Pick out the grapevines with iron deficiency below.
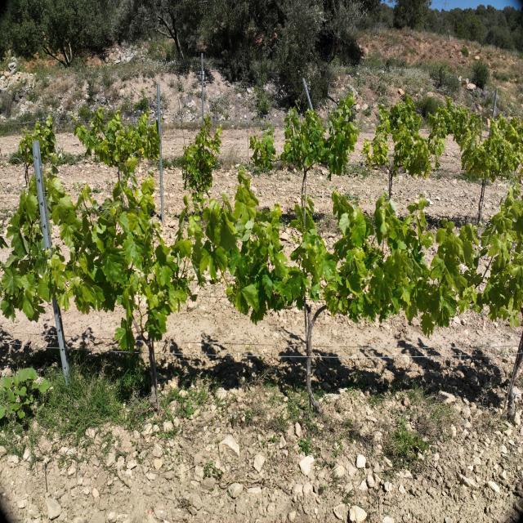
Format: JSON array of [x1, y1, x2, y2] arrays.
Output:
[[0, 169, 242, 423], [222, 194, 478, 419], [478, 186, 523, 401]]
